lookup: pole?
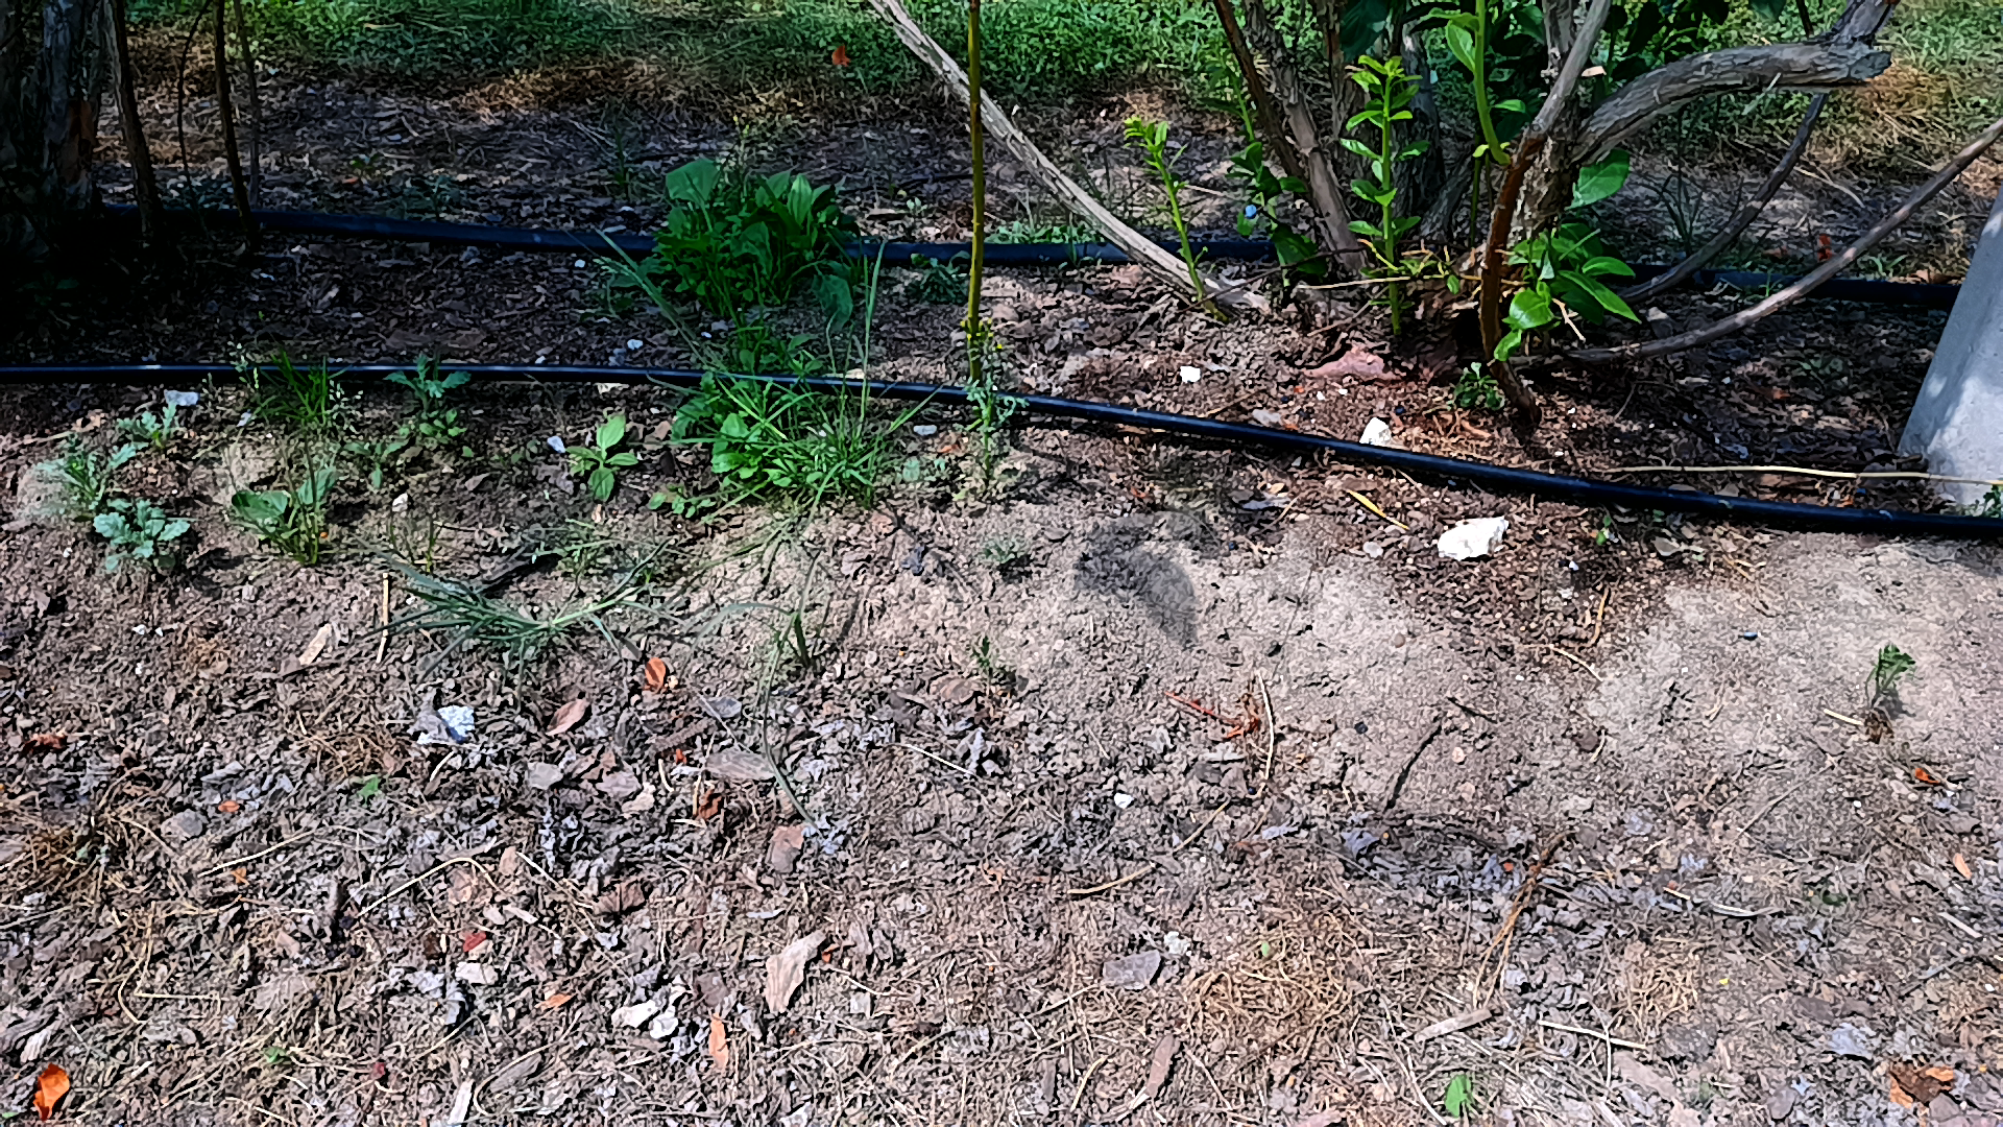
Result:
[1898,162,2001,515]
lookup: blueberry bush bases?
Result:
[0,56,259,411]
[1202,61,1892,504]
